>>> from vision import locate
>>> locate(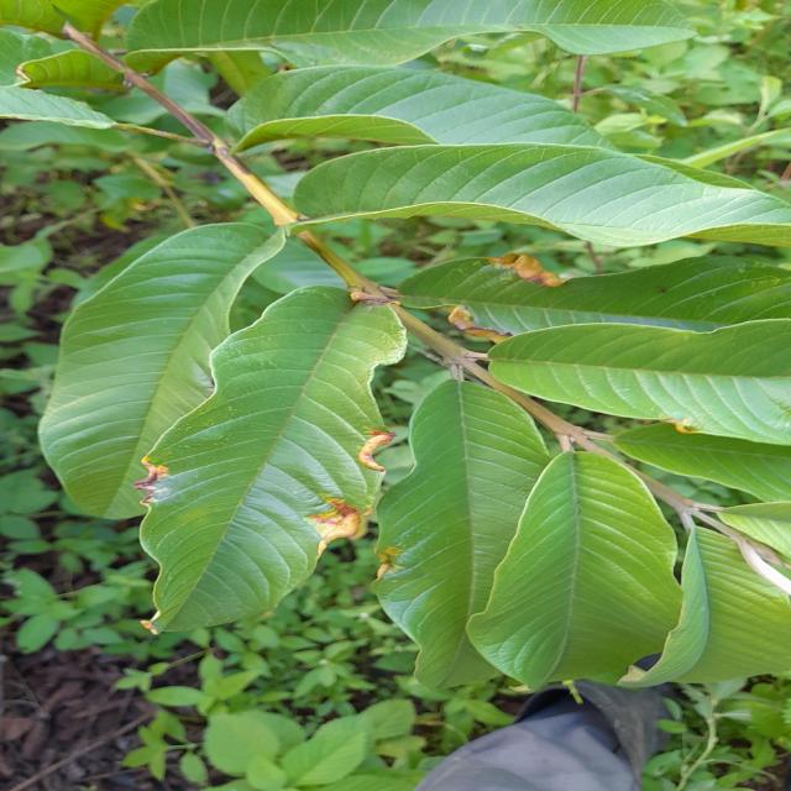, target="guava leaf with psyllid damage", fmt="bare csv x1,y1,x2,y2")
124,260,421,667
